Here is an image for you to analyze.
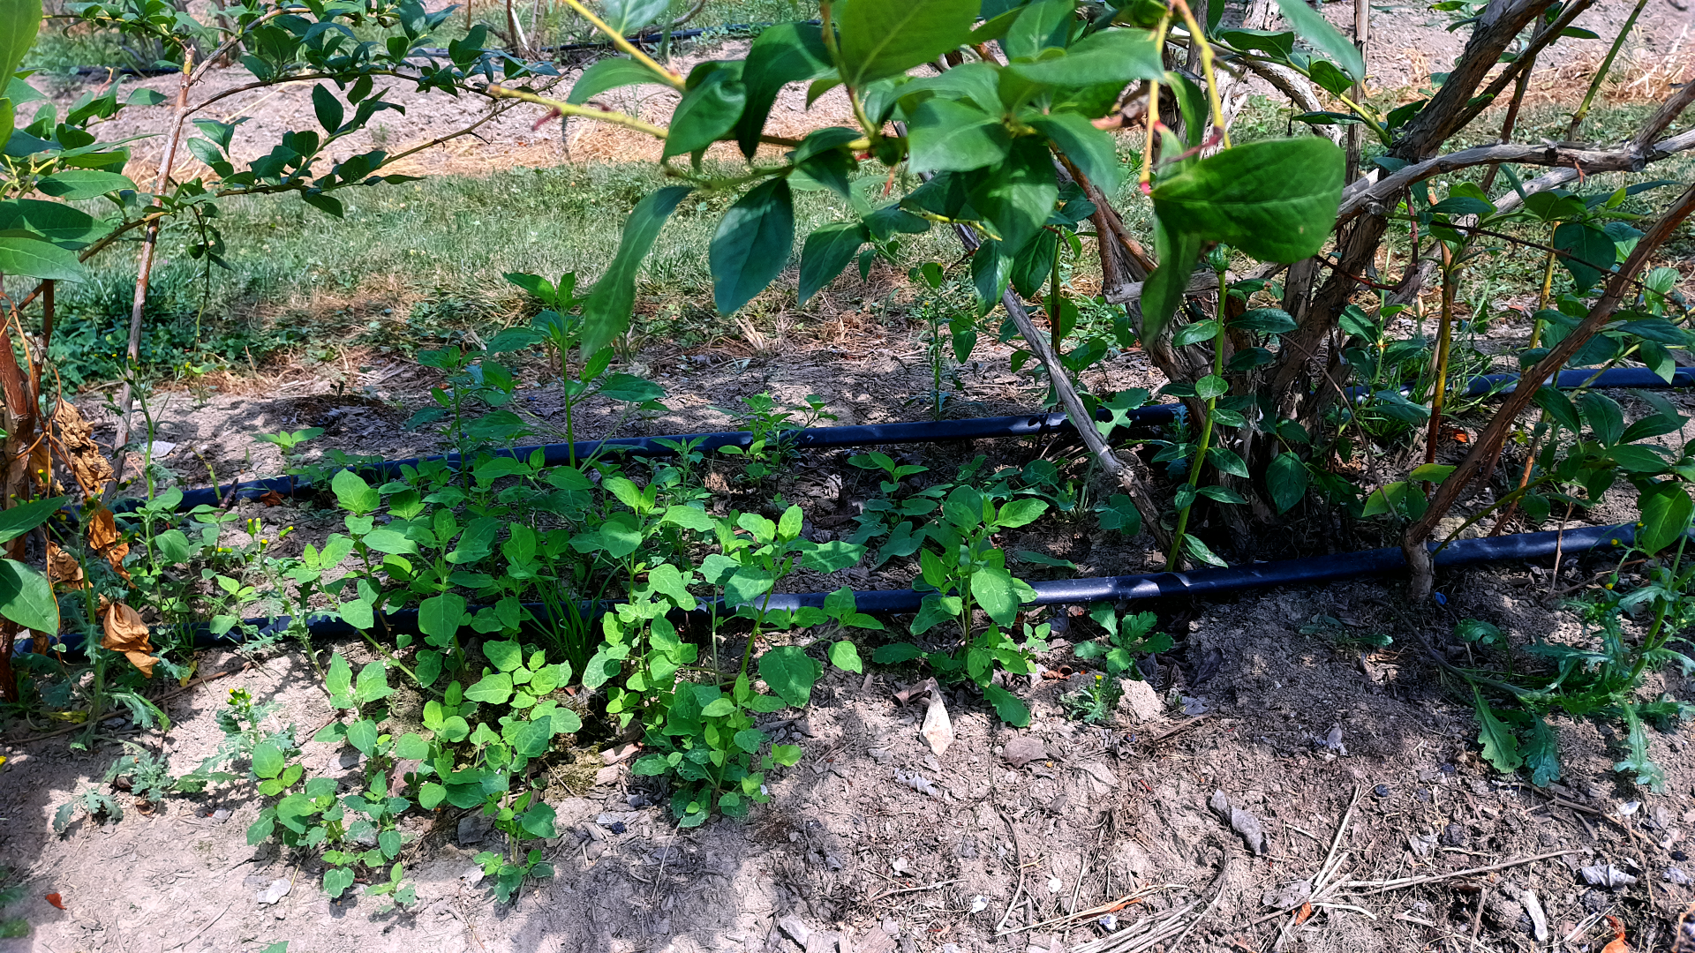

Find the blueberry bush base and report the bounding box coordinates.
[1079,329,1585,660]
